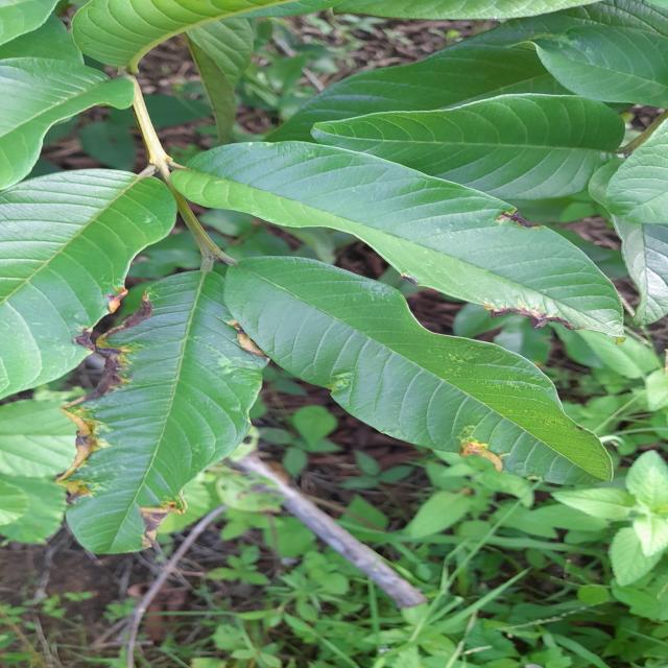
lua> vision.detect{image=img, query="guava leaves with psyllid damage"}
[80,258,271,560]
[199,228,641,495]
